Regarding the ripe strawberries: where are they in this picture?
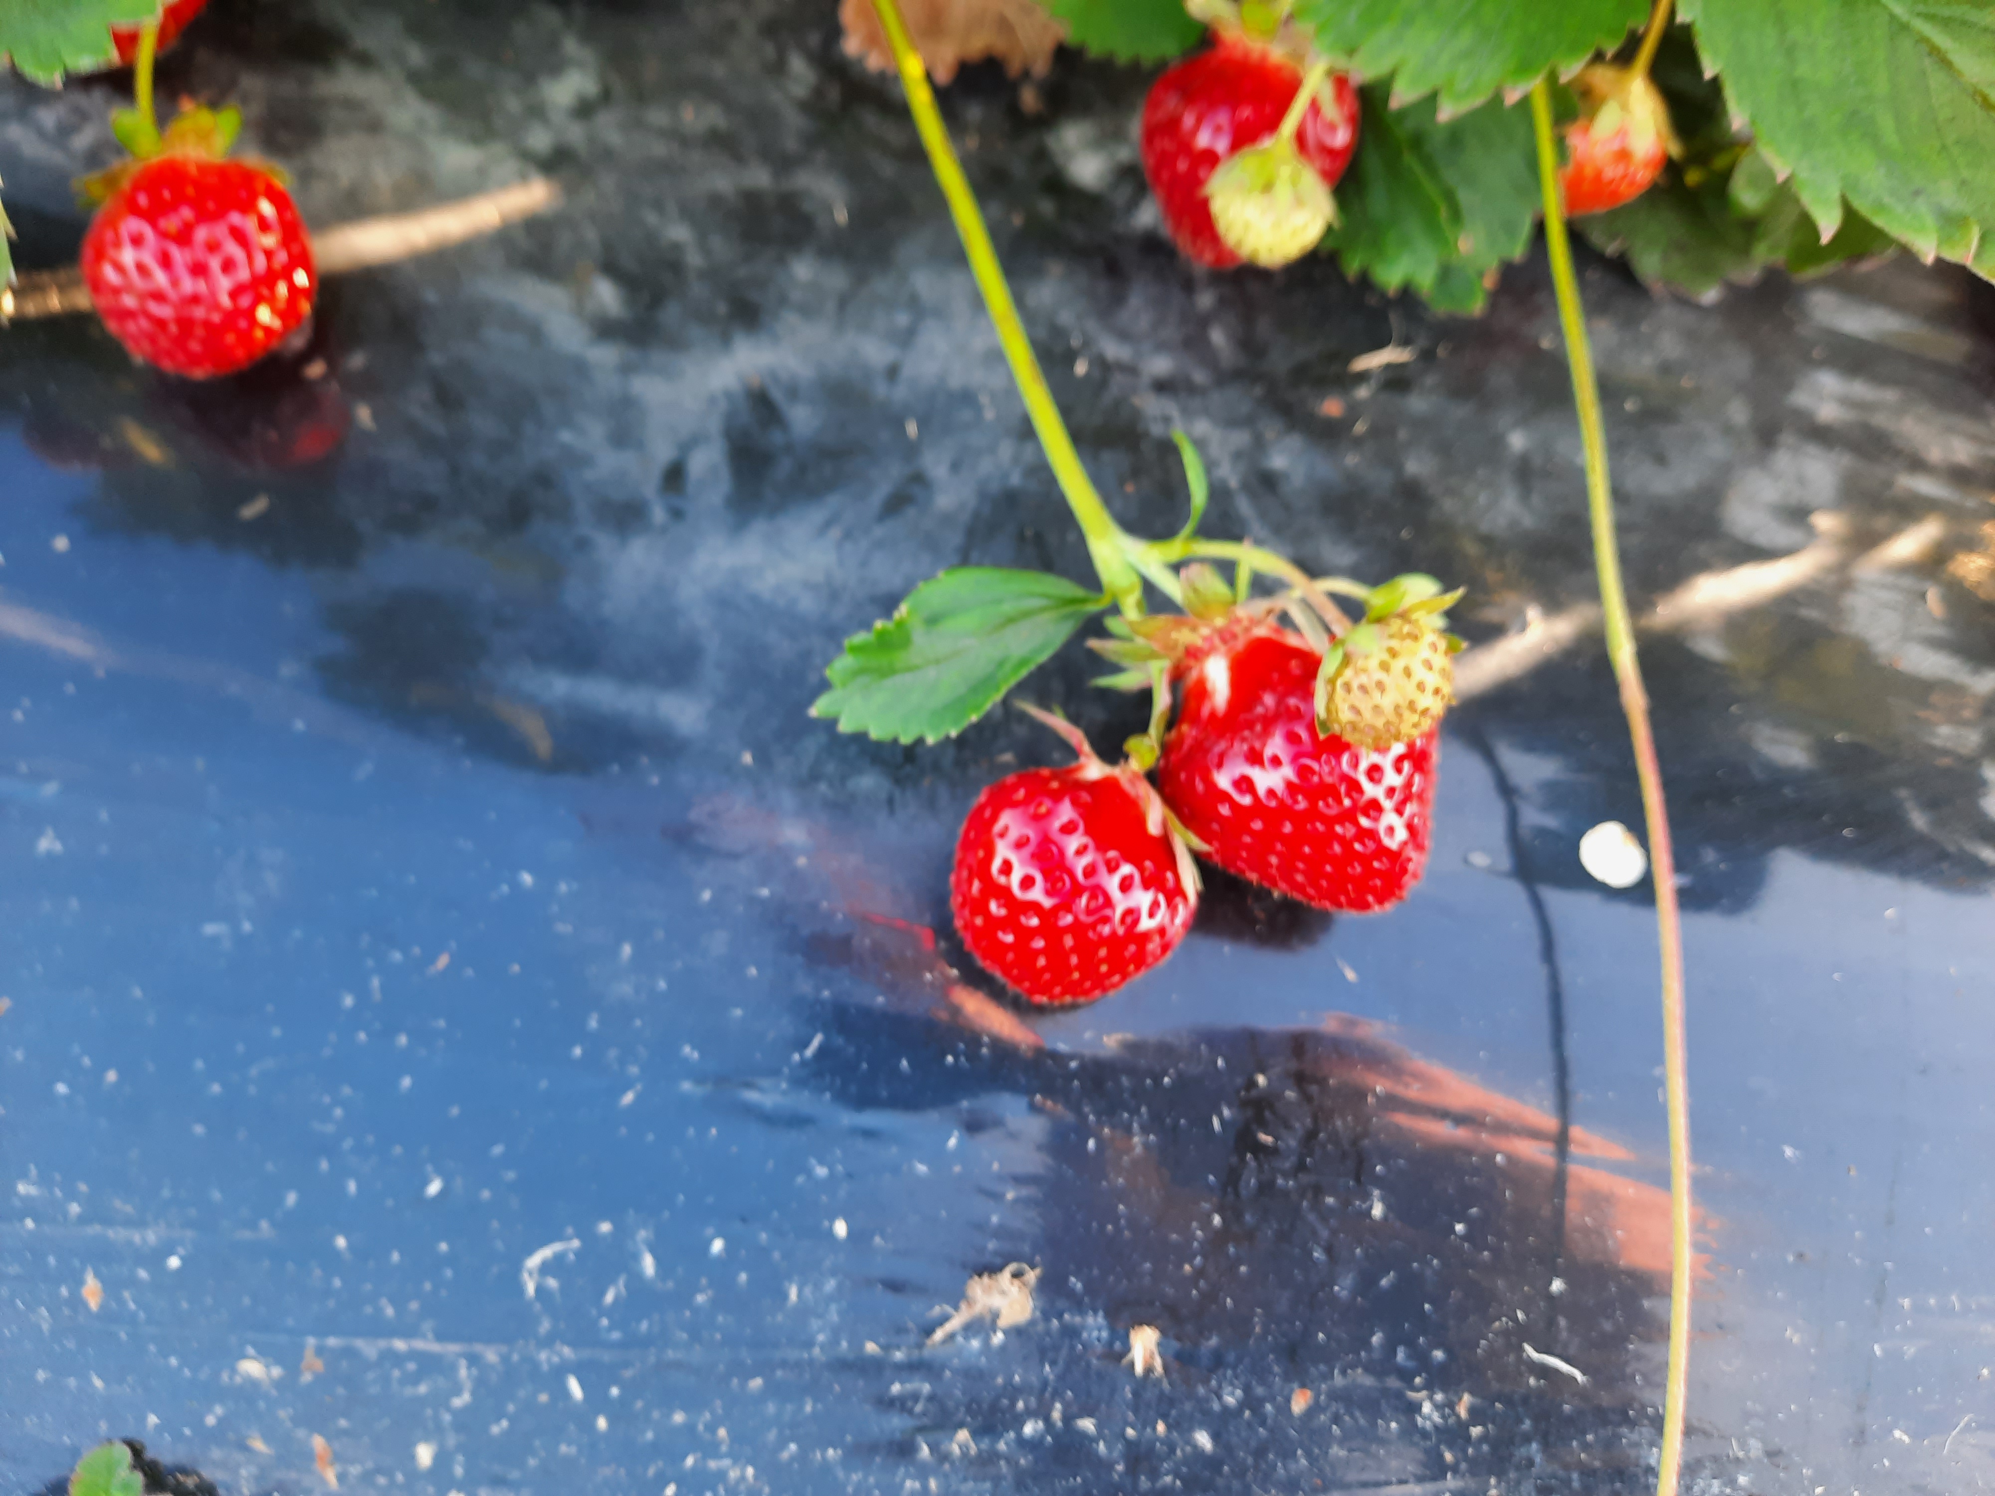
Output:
[942,768,1203,998]
[1124,627,1444,908]
[1510,72,1670,210]
[66,158,303,384]
[1163,40,1339,266]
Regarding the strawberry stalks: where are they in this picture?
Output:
[1091,518,1231,671]
[1257,59,1338,167]
[137,0,181,198]
[1613,0,1676,119]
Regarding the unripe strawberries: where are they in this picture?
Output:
[1205,160,1338,272]
[1319,634,1453,742]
